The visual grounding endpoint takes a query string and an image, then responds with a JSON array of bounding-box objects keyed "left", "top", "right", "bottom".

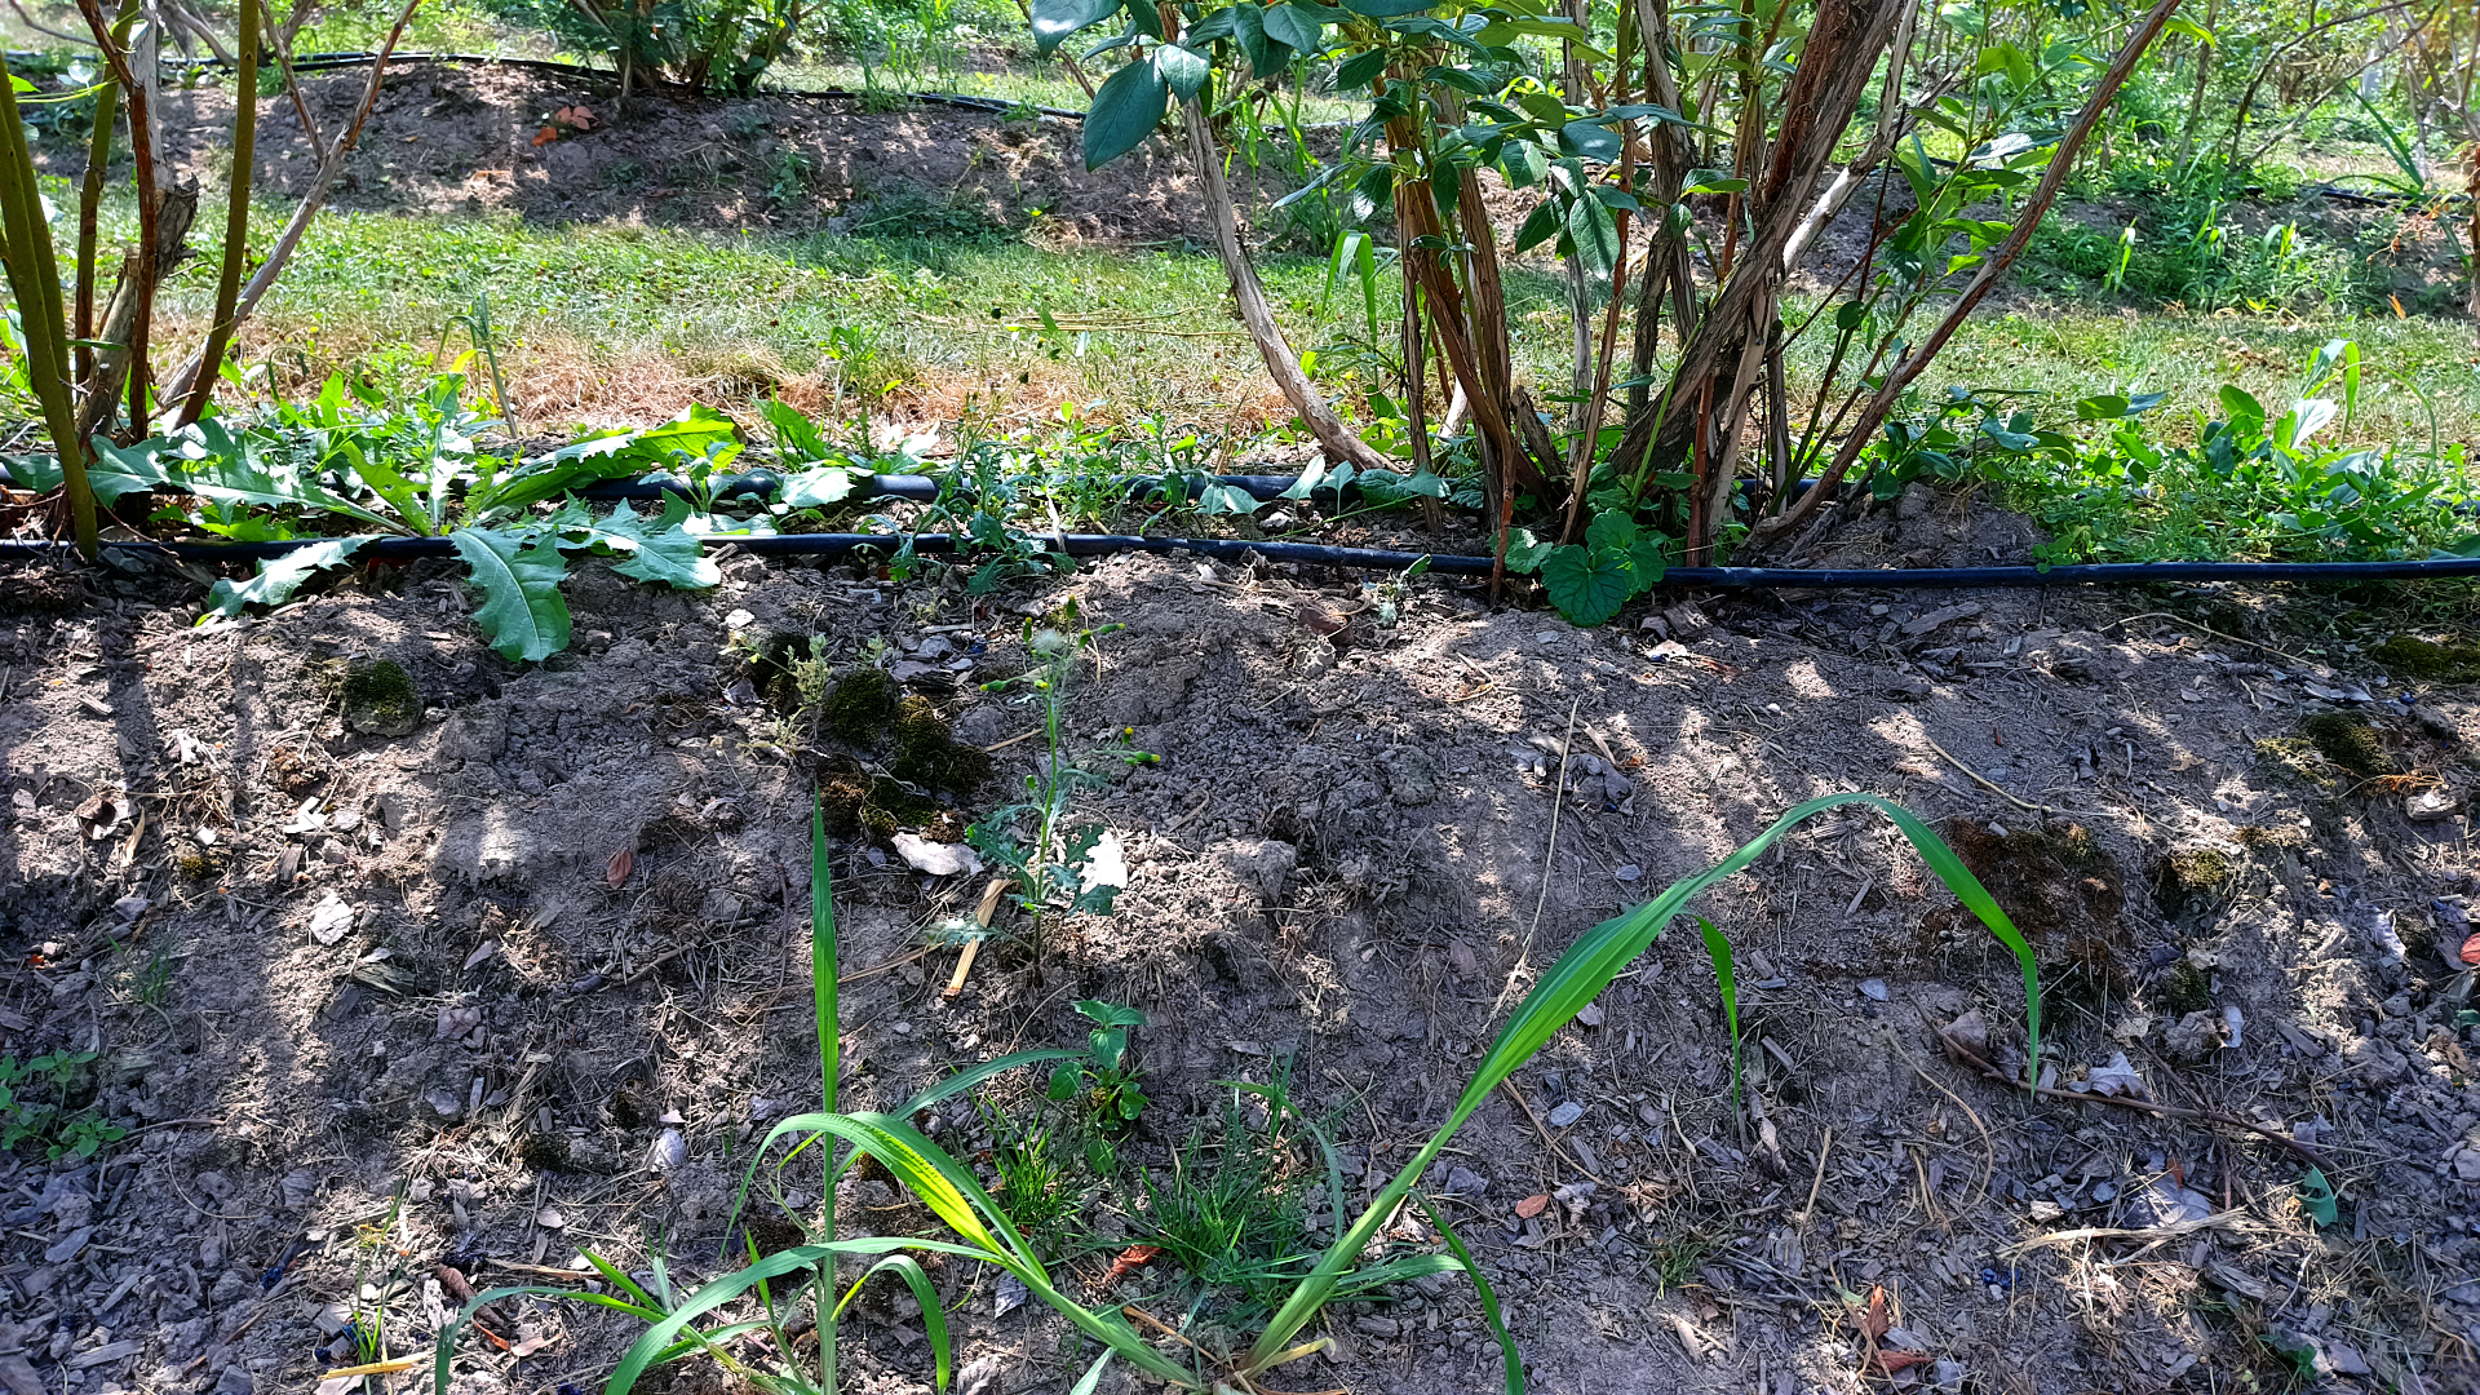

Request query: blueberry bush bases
[
  {"left": 1255, "top": 296, "right": 2010, "bottom": 705},
  {"left": 0, "top": 203, "right": 342, "bottom": 664},
  {"left": 2143, "top": 106, "right": 2289, "bottom": 222},
  {"left": 571, "top": 6, "right": 816, "bottom": 142}
]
